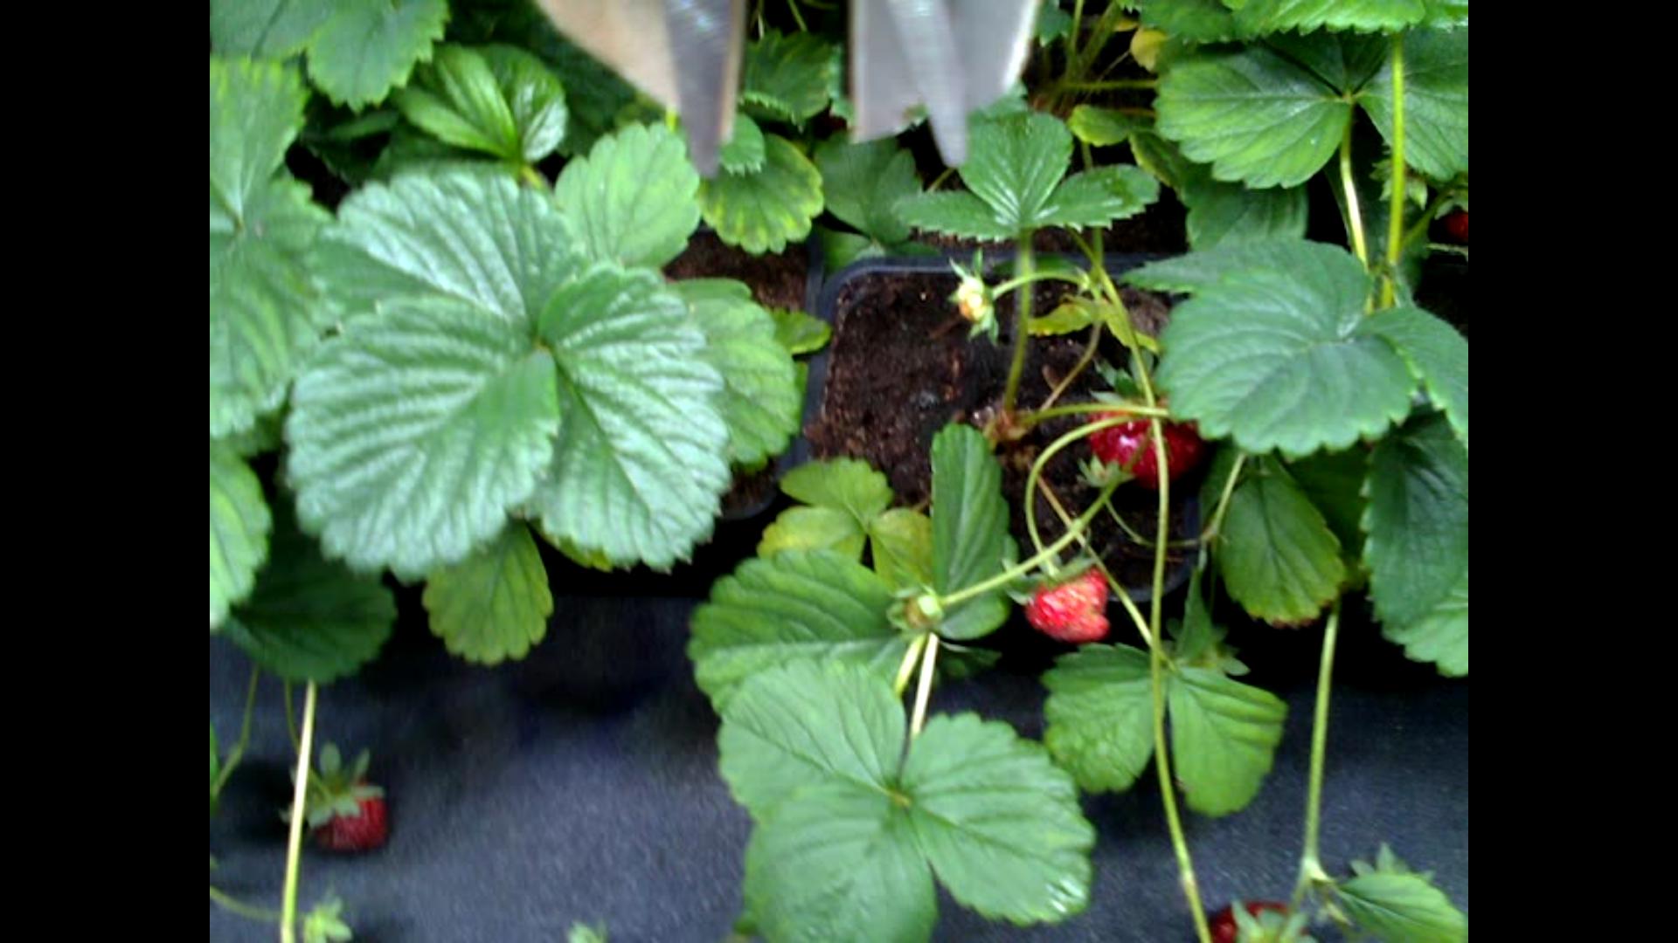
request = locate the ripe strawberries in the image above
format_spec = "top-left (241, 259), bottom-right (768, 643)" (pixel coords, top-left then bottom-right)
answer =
top-left (295, 755), bottom-right (412, 854)
top-left (1014, 555), bottom-right (1125, 644)
top-left (1083, 392), bottom-right (1197, 473)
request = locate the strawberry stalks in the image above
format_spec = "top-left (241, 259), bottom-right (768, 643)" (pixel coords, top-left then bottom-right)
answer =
top-left (1253, 842), bottom-right (1328, 943)
top-left (274, 683), bottom-right (357, 817)
top-left (1020, 476), bottom-right (1055, 607)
